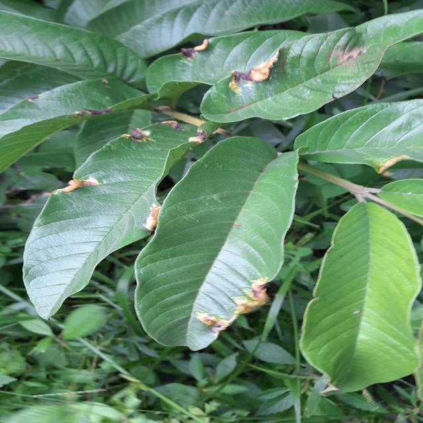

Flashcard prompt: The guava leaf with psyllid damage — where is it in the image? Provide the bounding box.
[134,134,315,353]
